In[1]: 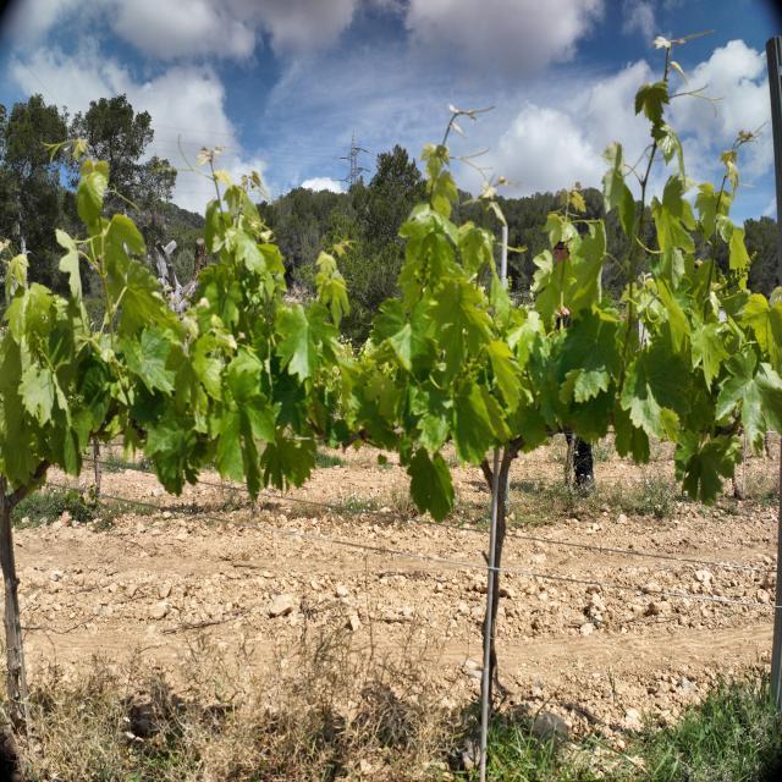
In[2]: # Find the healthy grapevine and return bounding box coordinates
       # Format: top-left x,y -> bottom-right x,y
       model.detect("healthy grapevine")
225,76 -> 782,723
